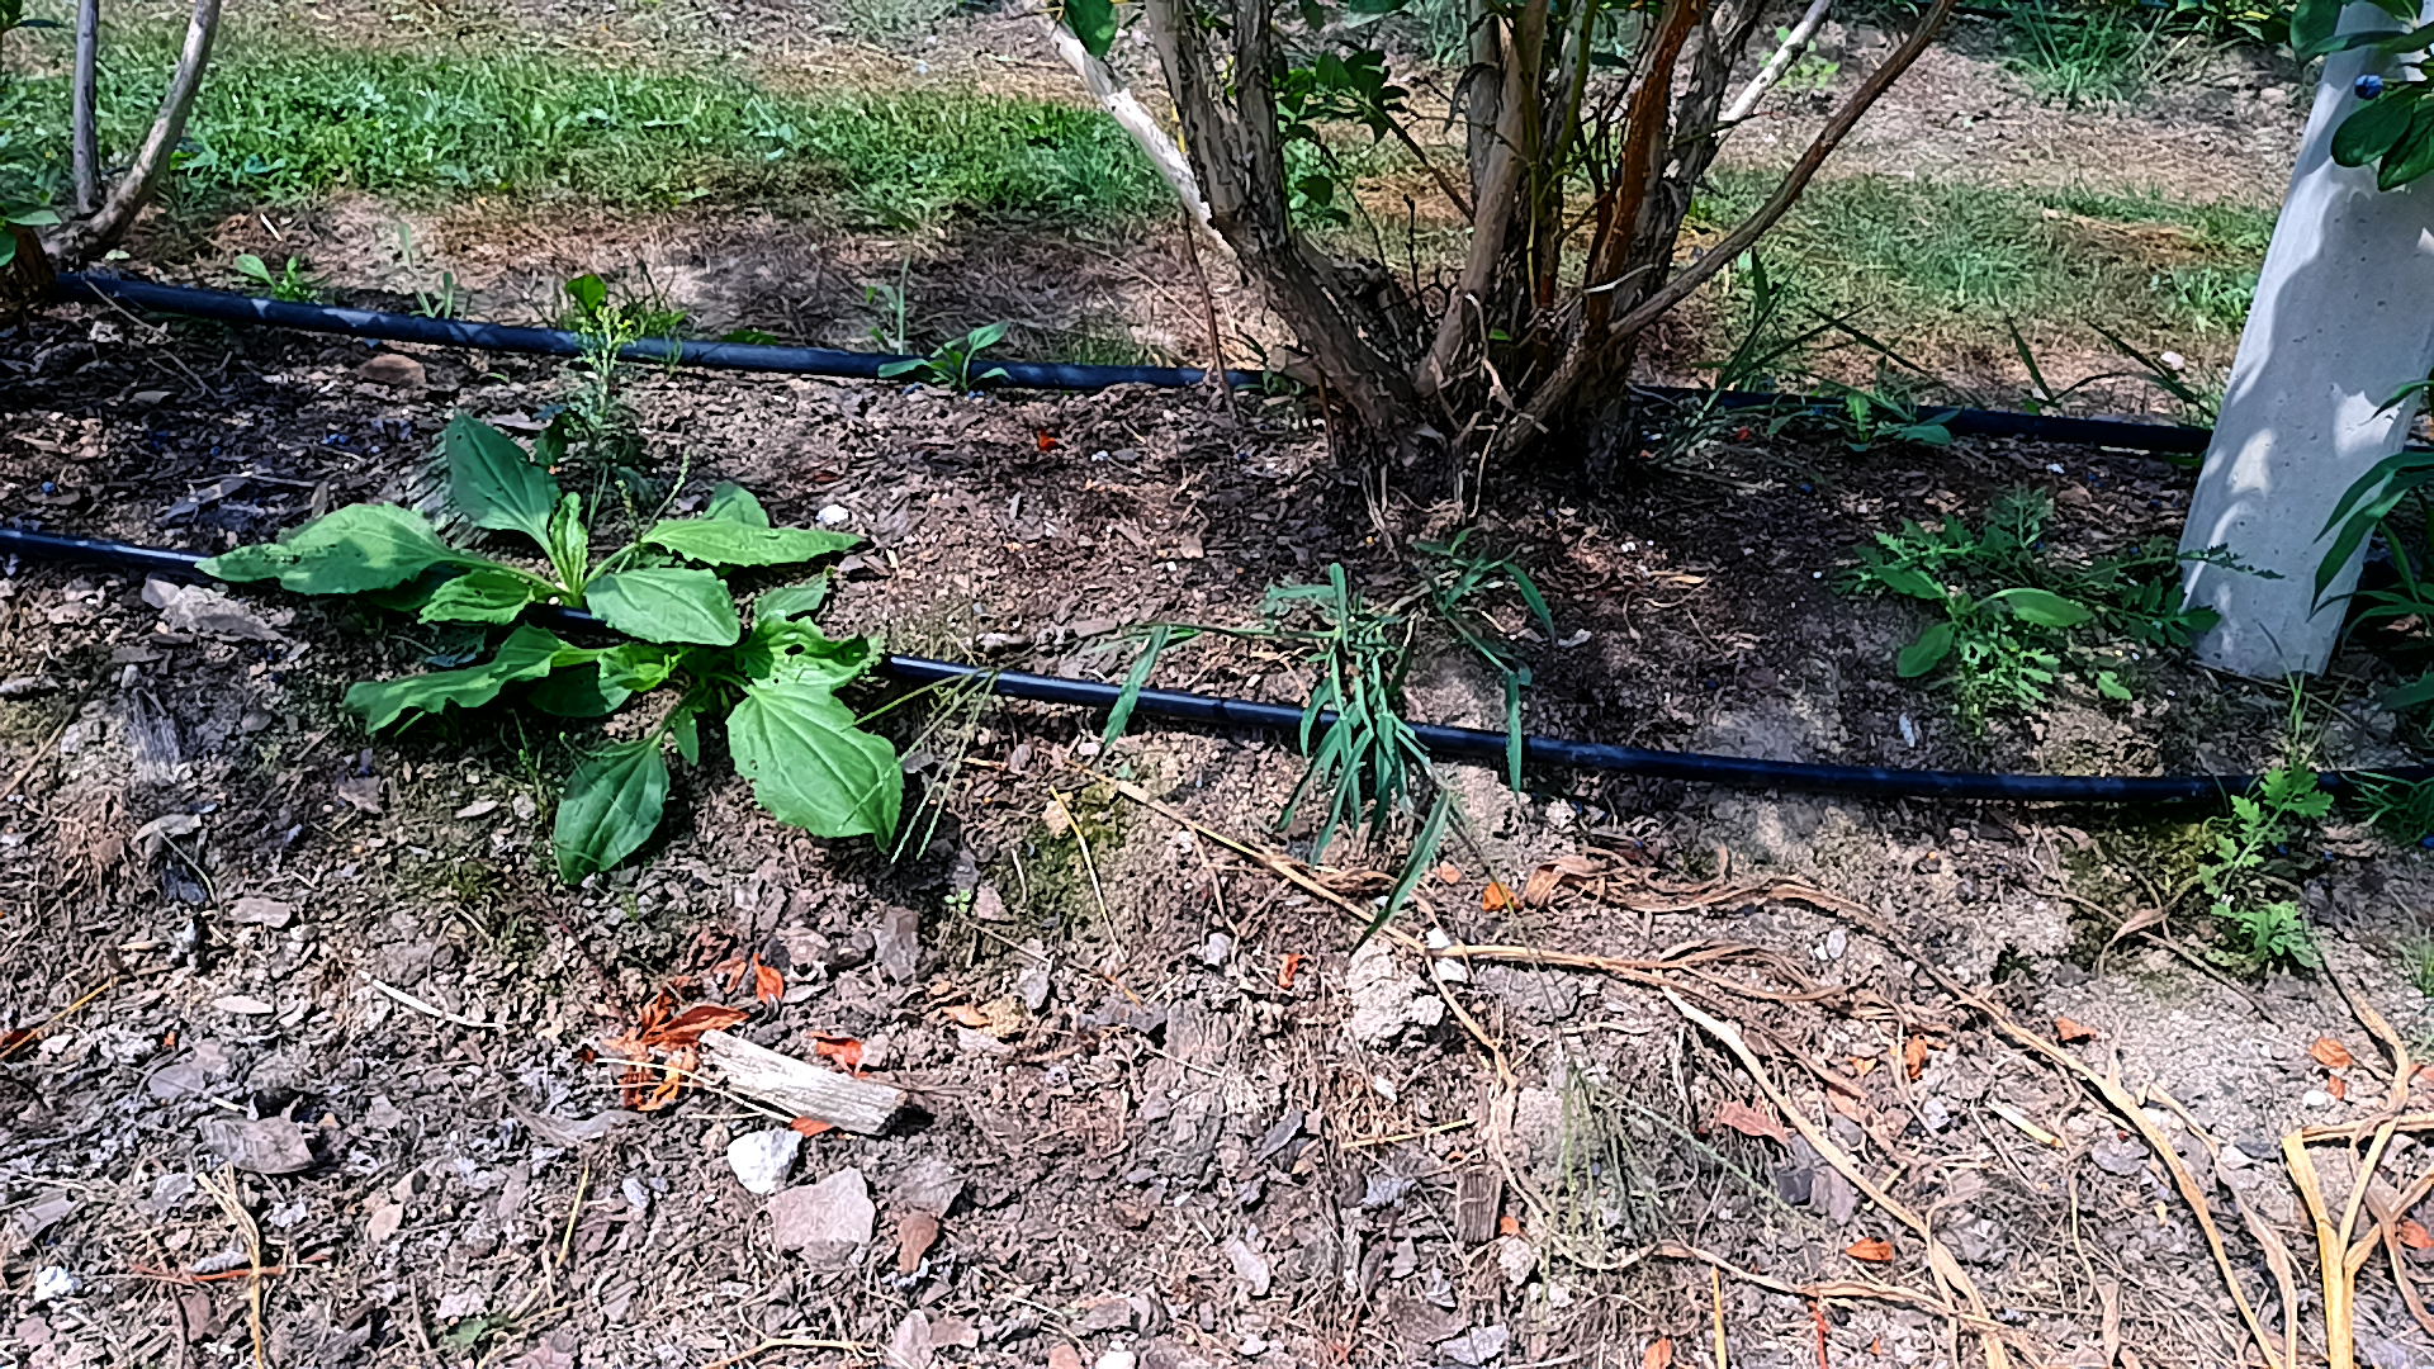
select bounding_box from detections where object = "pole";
[2164,16,2434,711]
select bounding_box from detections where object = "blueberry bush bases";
[0,49,227,437]
[1166,106,1822,570]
